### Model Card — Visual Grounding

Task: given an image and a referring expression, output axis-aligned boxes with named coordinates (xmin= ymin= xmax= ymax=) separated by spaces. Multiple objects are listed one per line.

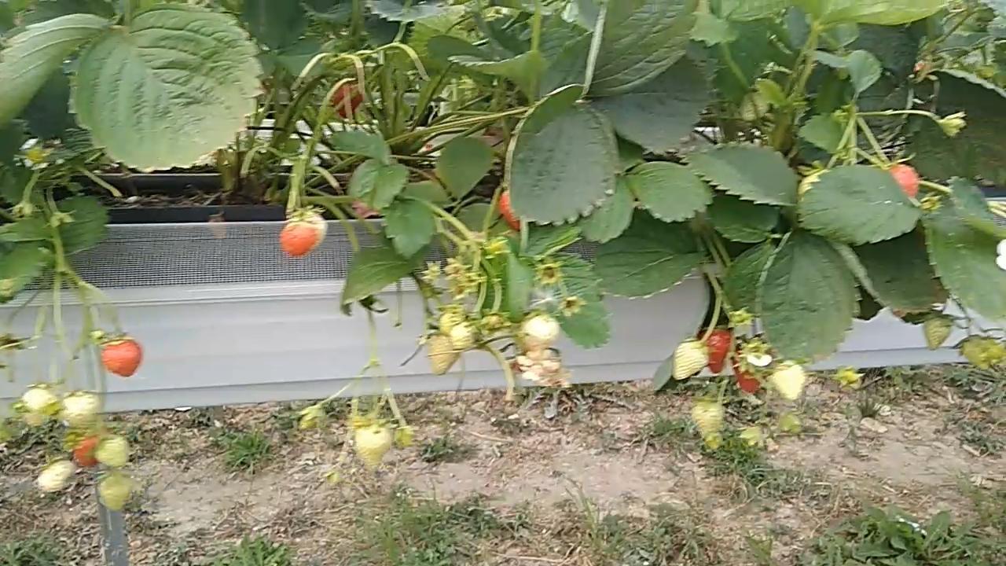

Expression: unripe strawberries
xmin=429 ymin=334 xmax=453 ymax=376
xmin=352 ymin=427 xmax=393 ymax=469
xmin=771 ymin=359 xmax=805 ymax=401
xmin=671 ymin=338 xmax=708 ymax=378
xmin=448 ymin=318 xmax=477 ymax=351
xmin=21 ymin=387 xmax=52 ymax=429
xmin=692 ymin=401 xmax=725 ymax=451
xmin=40 ymin=458 xmax=74 ymax=494
xmin=923 ymin=316 xmax=953 ymax=350
xmin=57 ymin=390 xmax=96 ymax=432
xmin=437 ymin=308 xmax=456 ymax=333
xmin=99 ymin=435 xmax=132 ymax=467
xmin=518 ymin=315 xmax=560 ymax=351
xmin=94 ymin=472 xmax=141 ymax=507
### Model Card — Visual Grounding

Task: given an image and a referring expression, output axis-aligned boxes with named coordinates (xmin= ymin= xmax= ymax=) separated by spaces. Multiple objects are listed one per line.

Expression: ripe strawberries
xmin=68 ymin=430 xmax=102 ymax=469
xmin=732 ymin=353 xmax=766 ymax=396
xmin=96 ymin=339 xmax=143 ymax=377
xmin=494 ymin=184 xmax=545 ymax=239
xmin=707 ymin=329 xmax=732 ymax=370
xmin=889 ymin=162 xmax=927 ymax=198
xmin=330 ymin=76 xmax=368 ymax=126
xmin=280 ymin=219 xmax=314 ymax=261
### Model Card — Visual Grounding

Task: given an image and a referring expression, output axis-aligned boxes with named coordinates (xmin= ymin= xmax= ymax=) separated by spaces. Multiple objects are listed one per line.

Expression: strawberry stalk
xmin=101 ymin=303 xmax=132 ymax=353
